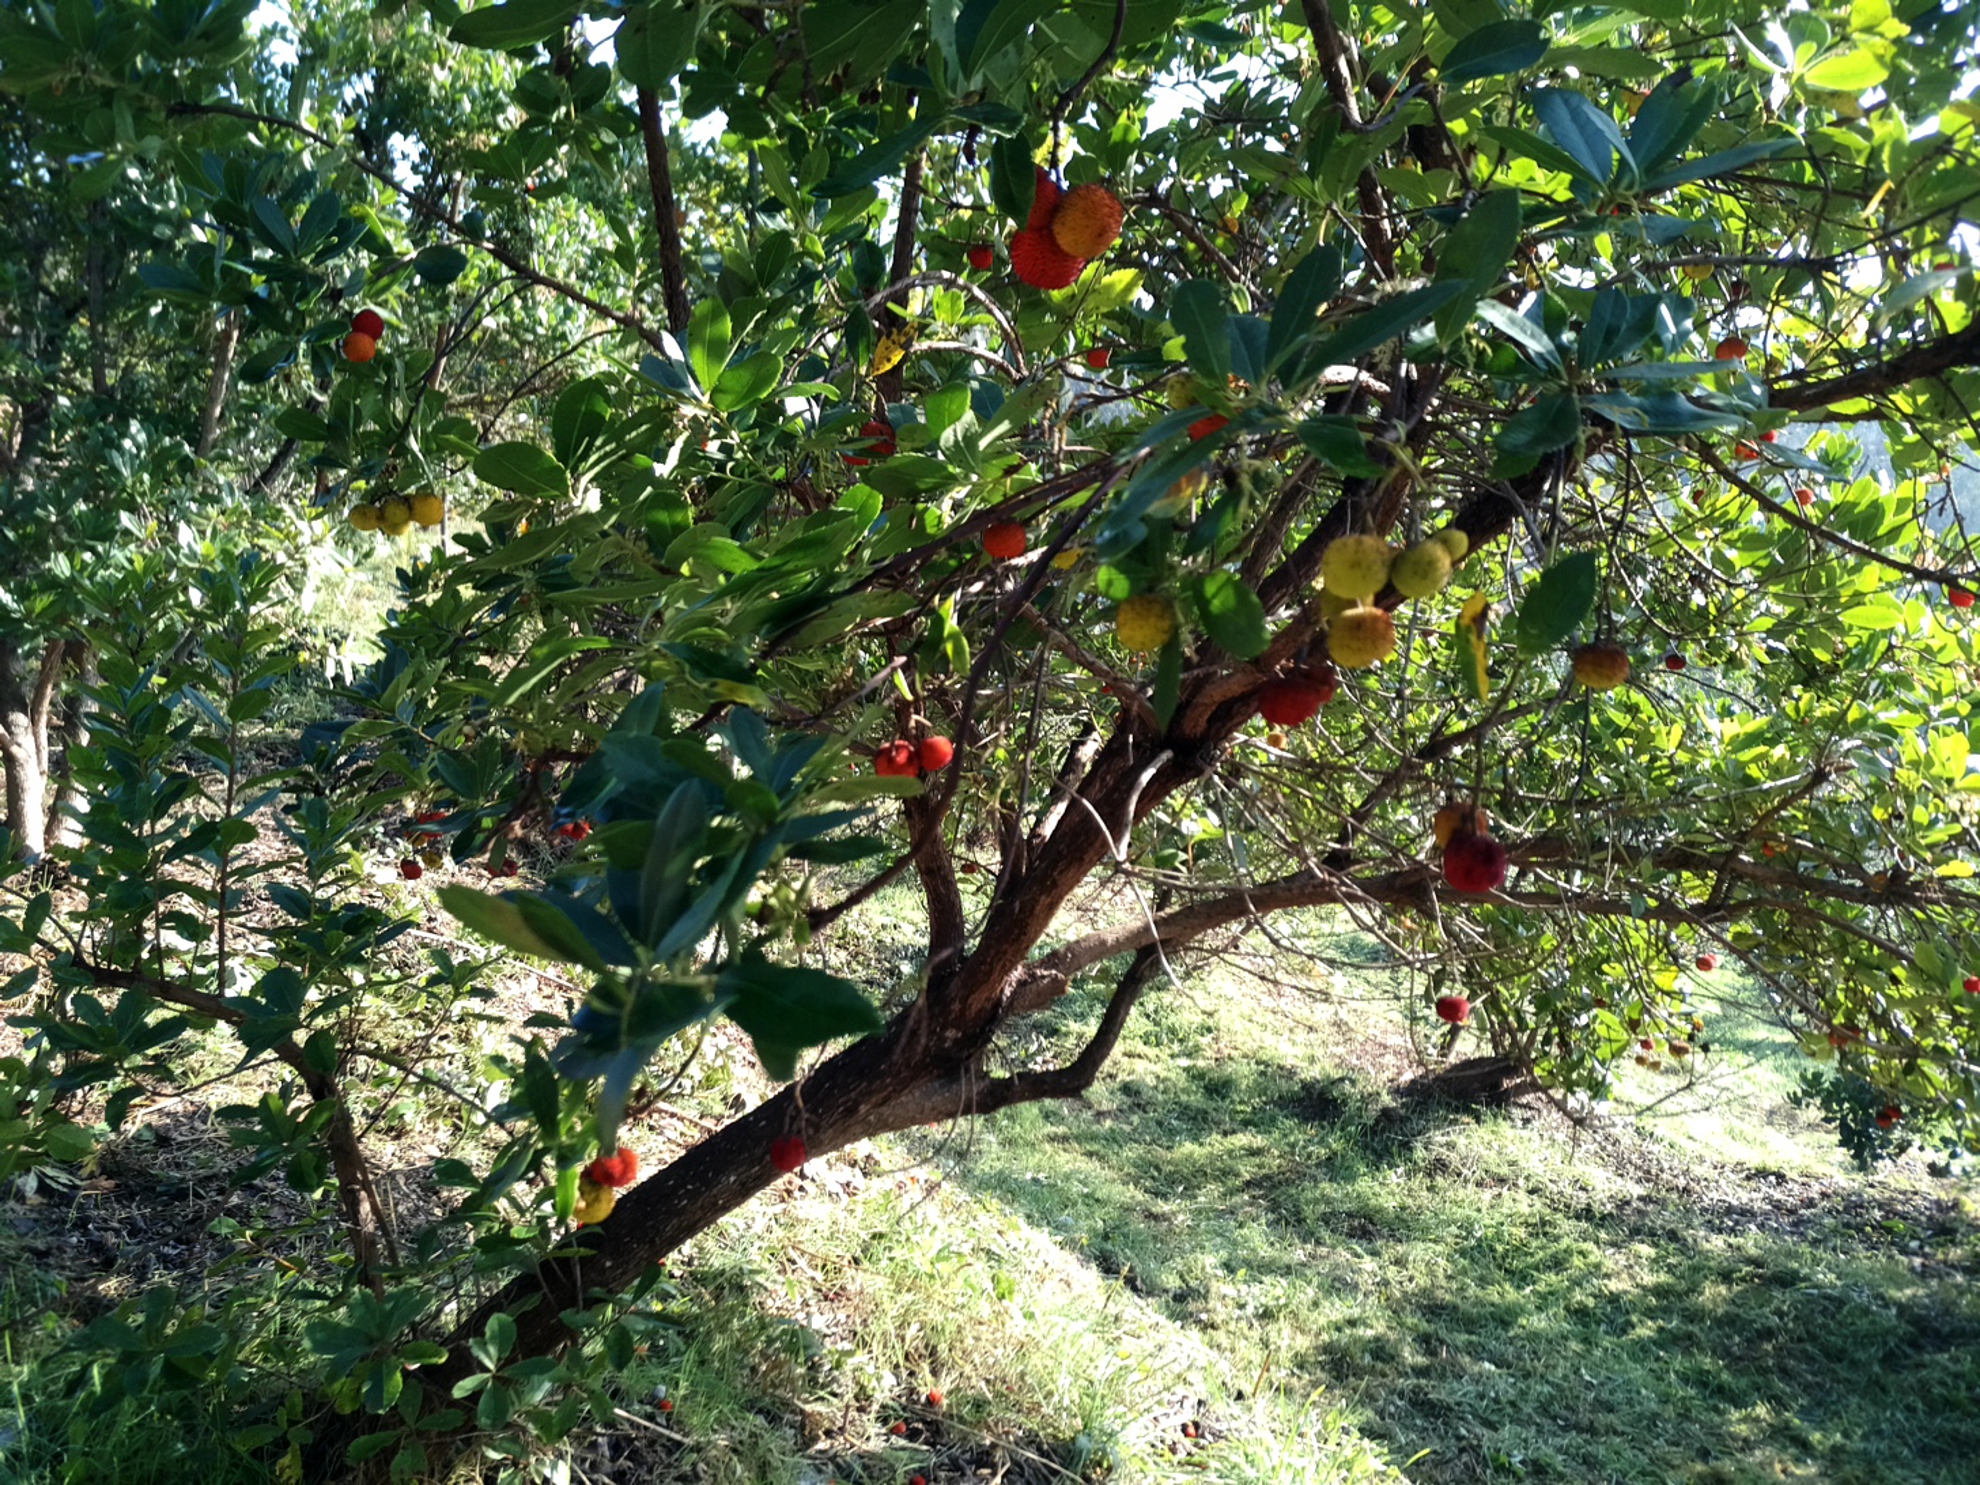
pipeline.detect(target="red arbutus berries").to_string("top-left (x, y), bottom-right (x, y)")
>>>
top-left (1963, 974), bottom-right (1980, 995)
top-left (770, 1135), bottom-right (806, 1171)
top-left (1716, 336), bottom-right (1747, 361)
top-left (919, 735), bottom-right (954, 770)
top-left (1885, 1106), bottom-right (1902, 1119)
top-left (1260, 674), bottom-right (1320, 726)
top-left (573, 821), bottom-right (590, 840)
top-left (1014, 150), bottom-right (1063, 229)
top-left (1184, 413), bottom-right (1234, 442)
top-left (586, 1156), bottom-right (623, 1183)
top-left (613, 1148), bottom-right (639, 1186)
top-left (558, 820), bottom-right (575, 837)
top-left (1446, 834), bottom-right (1507, 895)
top-left (857, 415), bottom-right (898, 456)
top-left (1952, 585), bottom-right (1974, 606)
top-left (1874, 1111), bottom-right (1890, 1127)
top-left (1695, 954), bottom-right (1713, 969)
top-left (968, 242), bottom-right (994, 268)
top-left (1087, 347), bottom-right (1112, 369)
top-left (1437, 996), bottom-right (1466, 1021)
top-left (401, 861), bottom-right (421, 879)
top-left (1759, 428), bottom-right (1776, 443)
top-left (1792, 487), bottom-right (1812, 504)
top-left (1666, 654), bottom-right (1685, 671)
top-left (1010, 227), bottom-right (1084, 297)
top-left (1641, 1038), bottom-right (1654, 1050)
top-left (878, 736), bottom-right (918, 780)
top-left (351, 309), bottom-right (385, 338)
top-left (983, 520), bottom-right (1030, 561)
top-left (1734, 440), bottom-right (1760, 460)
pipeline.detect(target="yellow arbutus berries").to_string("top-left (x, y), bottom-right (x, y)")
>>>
top-left (1112, 585), bottom-right (1170, 647)
top-left (409, 492), bottom-right (446, 524)
top-left (1055, 183), bottom-right (1127, 259)
top-left (1328, 606), bottom-right (1395, 668)
top-left (1217, 215), bottom-right (1238, 237)
top-left (571, 1177), bottom-right (615, 1222)
top-left (340, 330), bottom-right (376, 361)
top-left (1436, 804), bottom-right (1489, 844)
top-left (1569, 640), bottom-right (1629, 688)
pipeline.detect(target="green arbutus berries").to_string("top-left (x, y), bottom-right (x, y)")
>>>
top-left (381, 496), bottom-right (411, 521)
top-left (1391, 538), bottom-right (1455, 598)
top-left (1166, 370), bottom-right (1203, 413)
top-left (347, 501), bottom-right (381, 530)
top-left (1324, 532), bottom-right (1389, 599)
top-left (383, 520), bottom-right (409, 534)
top-left (1433, 530), bottom-right (1471, 561)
